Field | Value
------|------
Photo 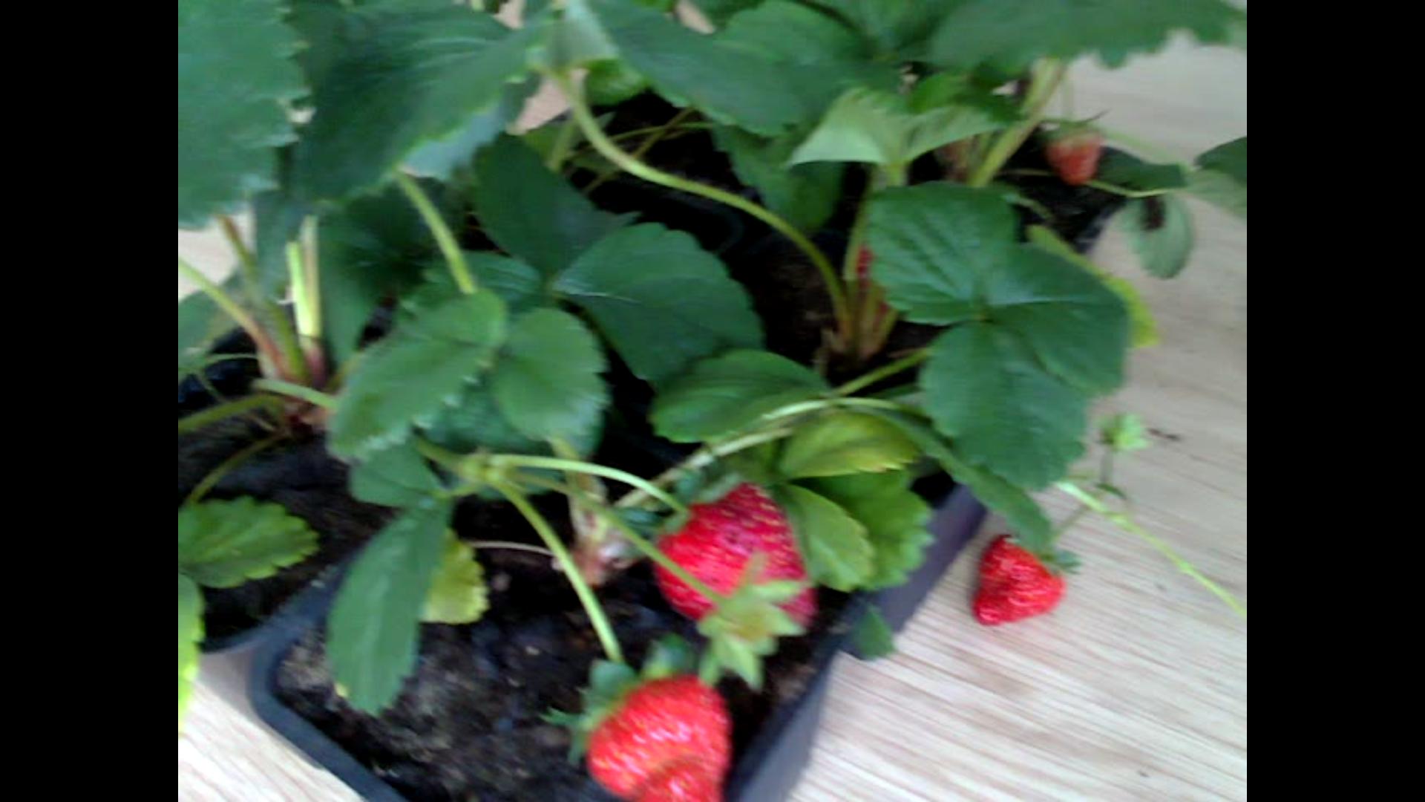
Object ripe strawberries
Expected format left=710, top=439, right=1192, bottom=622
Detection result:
left=641, top=478, right=820, bottom=641
left=588, top=670, right=728, bottom=800
left=965, top=526, right=1064, bottom=629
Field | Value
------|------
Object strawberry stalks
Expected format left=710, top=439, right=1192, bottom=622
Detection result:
left=580, top=443, right=702, bottom=540
left=1020, top=500, right=1117, bottom=576
left=1057, top=88, right=1090, bottom=144
left=668, top=554, right=755, bottom=612
left=561, top=571, right=645, bottom=696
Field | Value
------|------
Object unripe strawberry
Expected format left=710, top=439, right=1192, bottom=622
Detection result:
left=1047, top=128, right=1107, bottom=185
